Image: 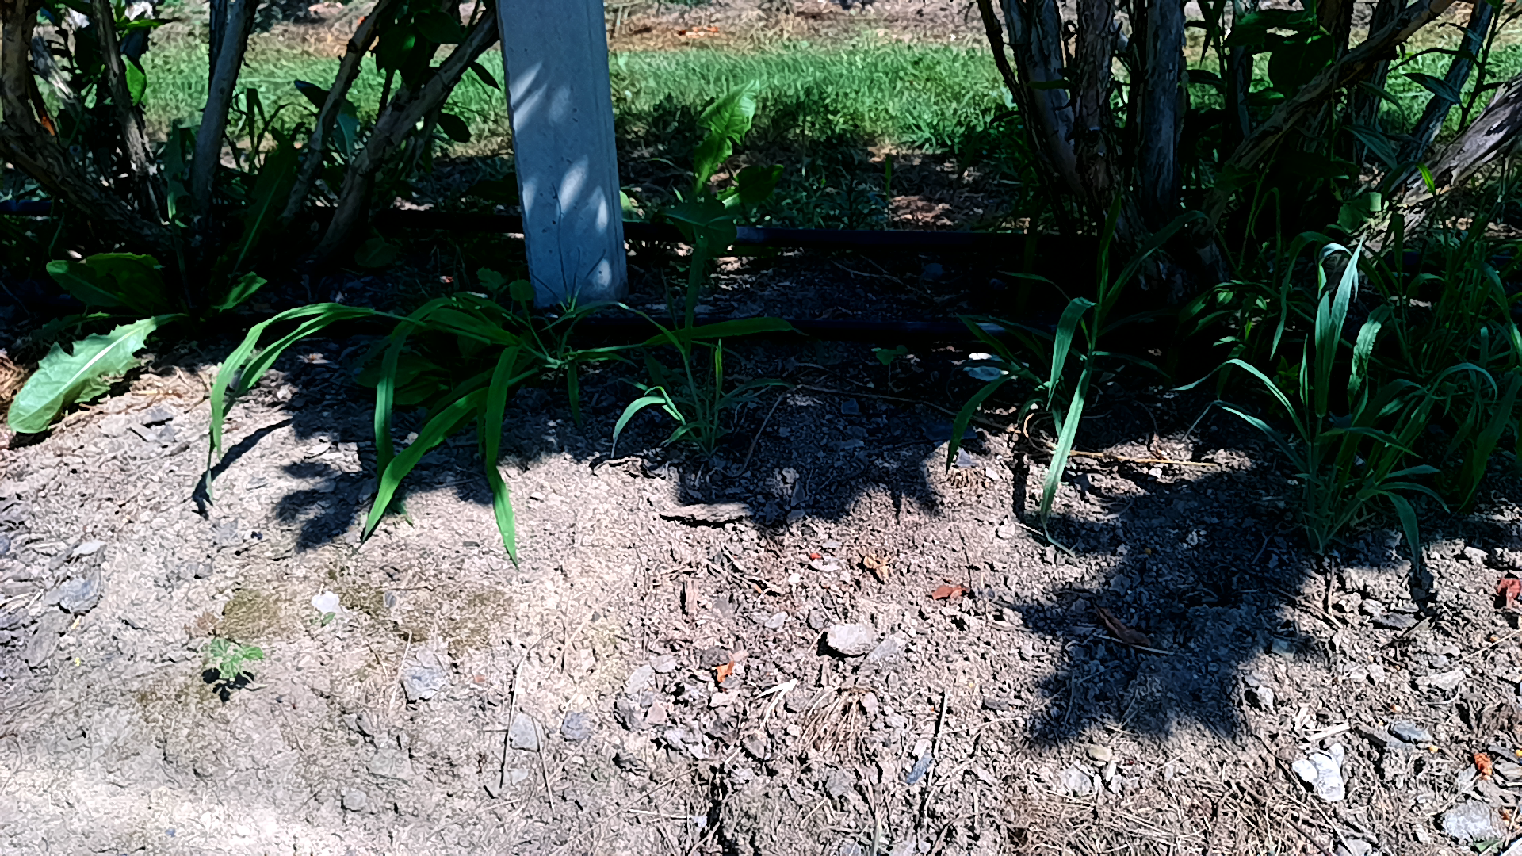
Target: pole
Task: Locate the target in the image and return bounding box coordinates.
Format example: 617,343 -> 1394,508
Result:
489,1 -> 657,349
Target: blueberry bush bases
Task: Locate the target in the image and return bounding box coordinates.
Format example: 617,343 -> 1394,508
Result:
957,59 -> 1492,460
0,36 -> 465,403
